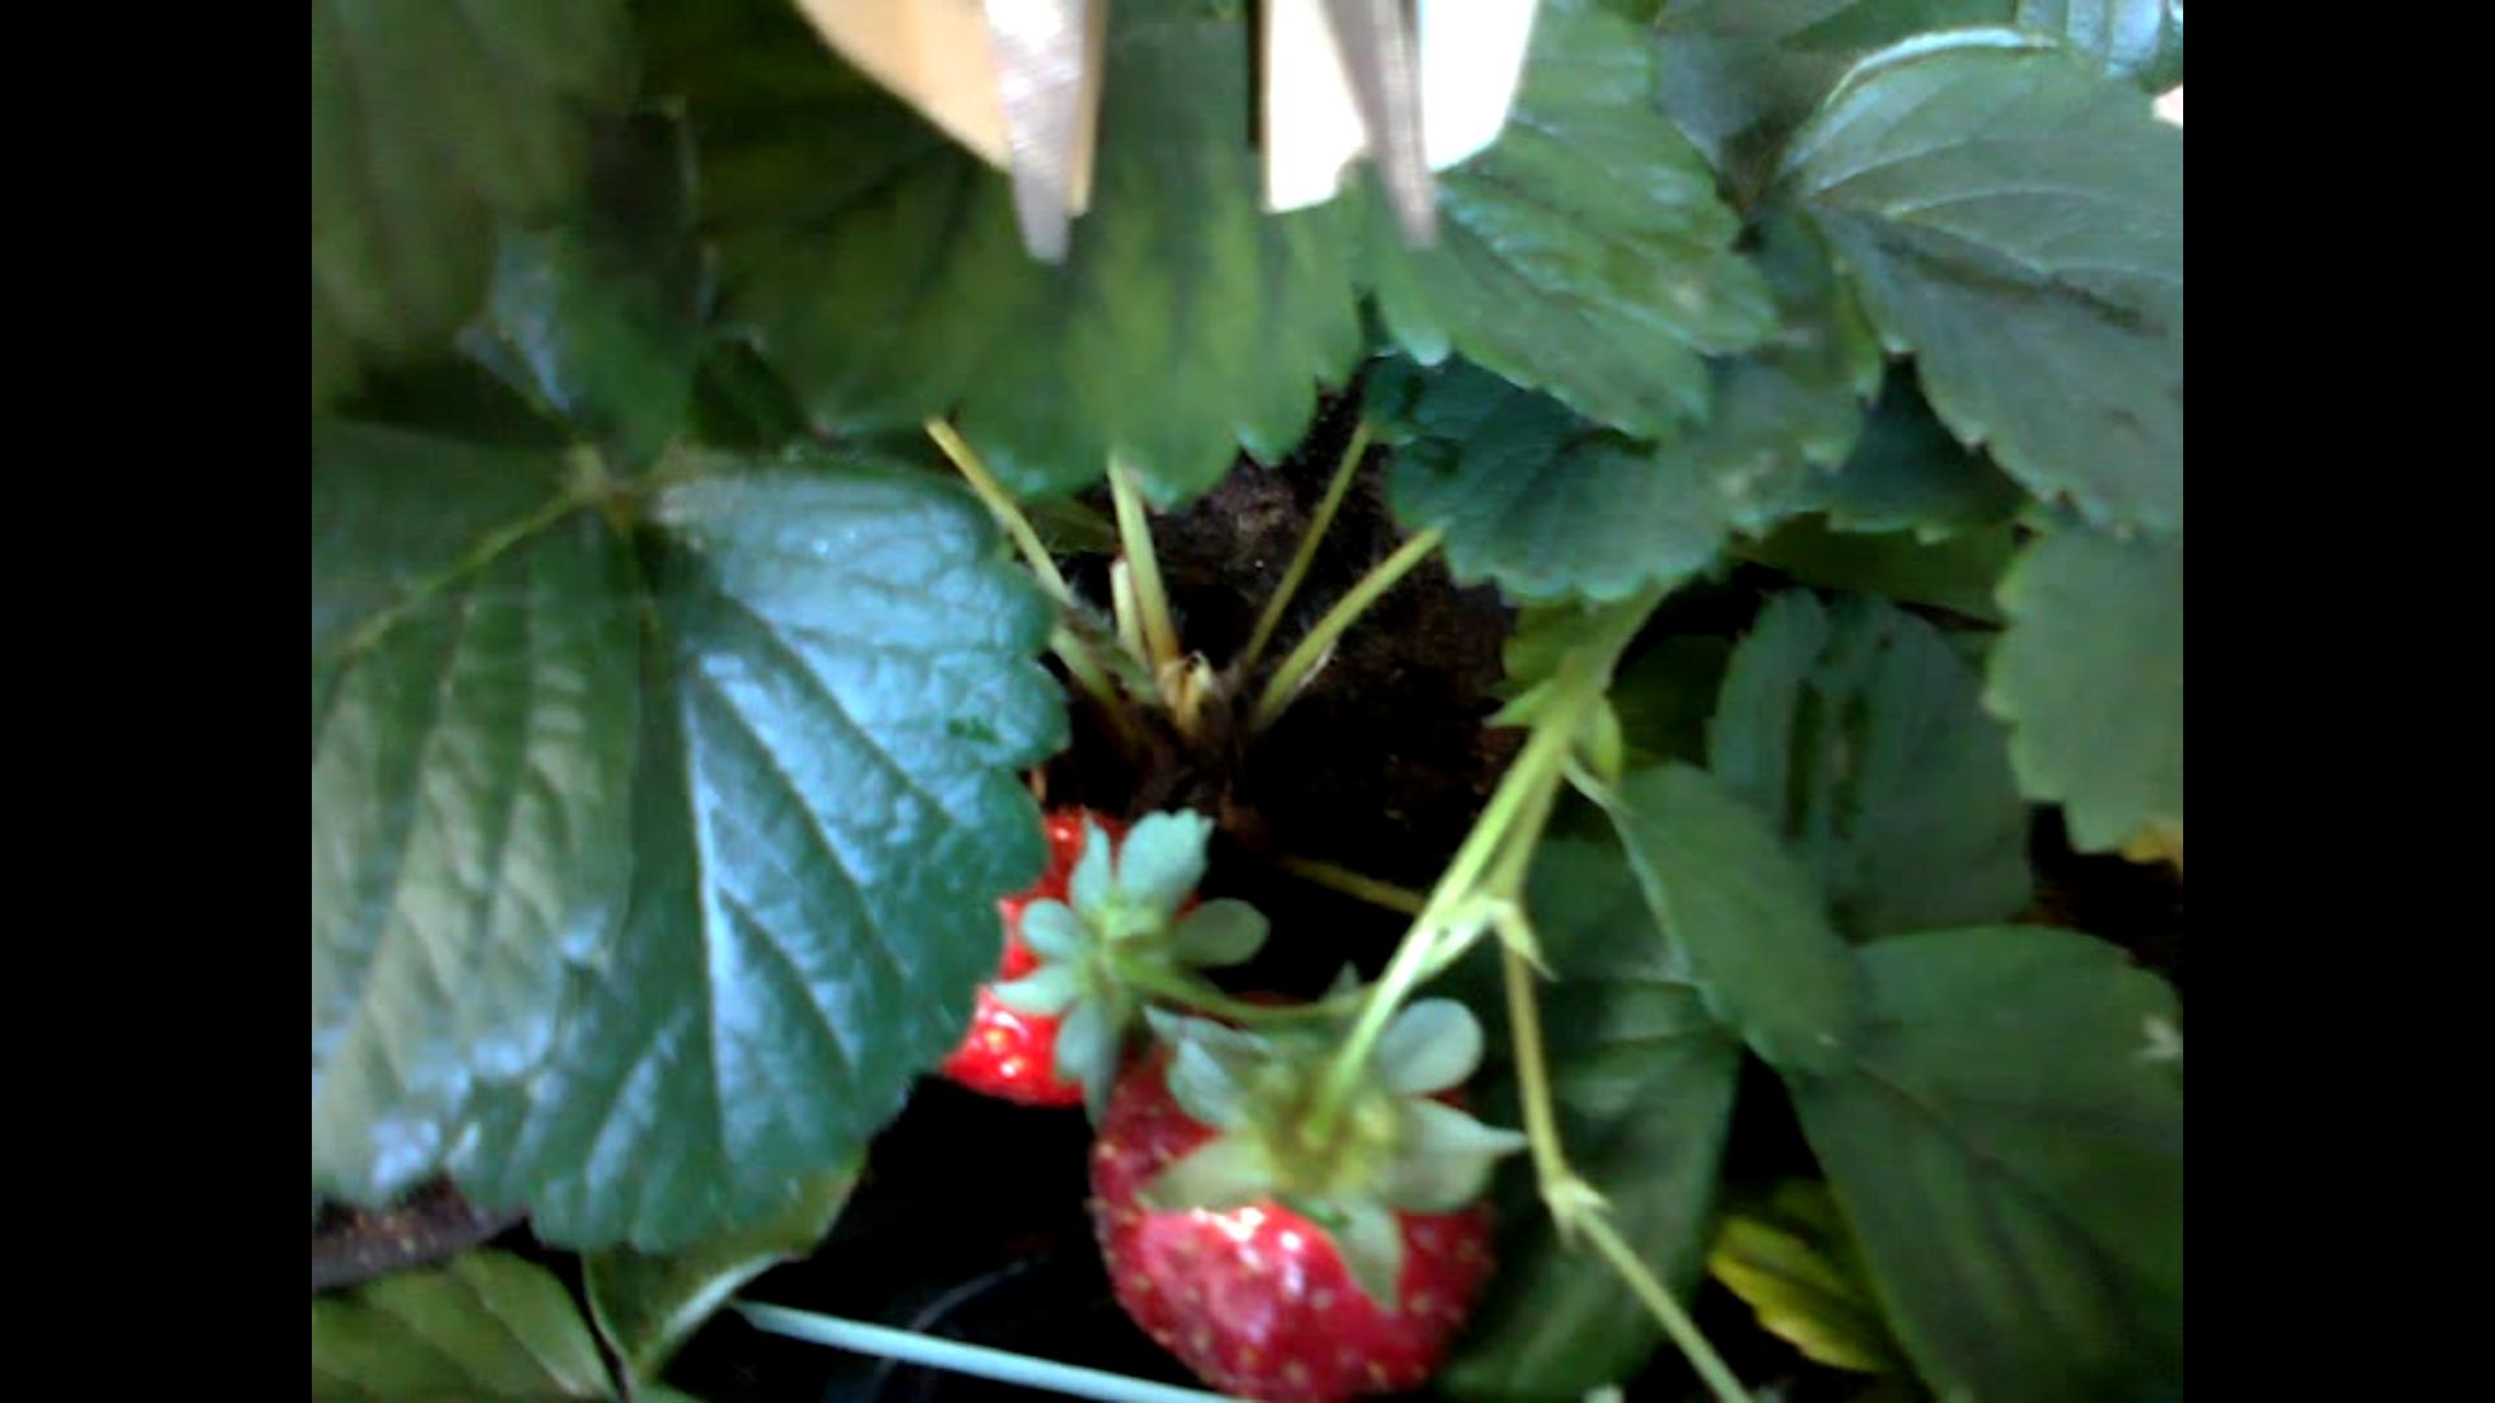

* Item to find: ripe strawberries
[835,785,1195,1091]
[1047,976,1626,1403]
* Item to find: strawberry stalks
[1038,892,1424,1044]
[1238,663,1572,1224]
